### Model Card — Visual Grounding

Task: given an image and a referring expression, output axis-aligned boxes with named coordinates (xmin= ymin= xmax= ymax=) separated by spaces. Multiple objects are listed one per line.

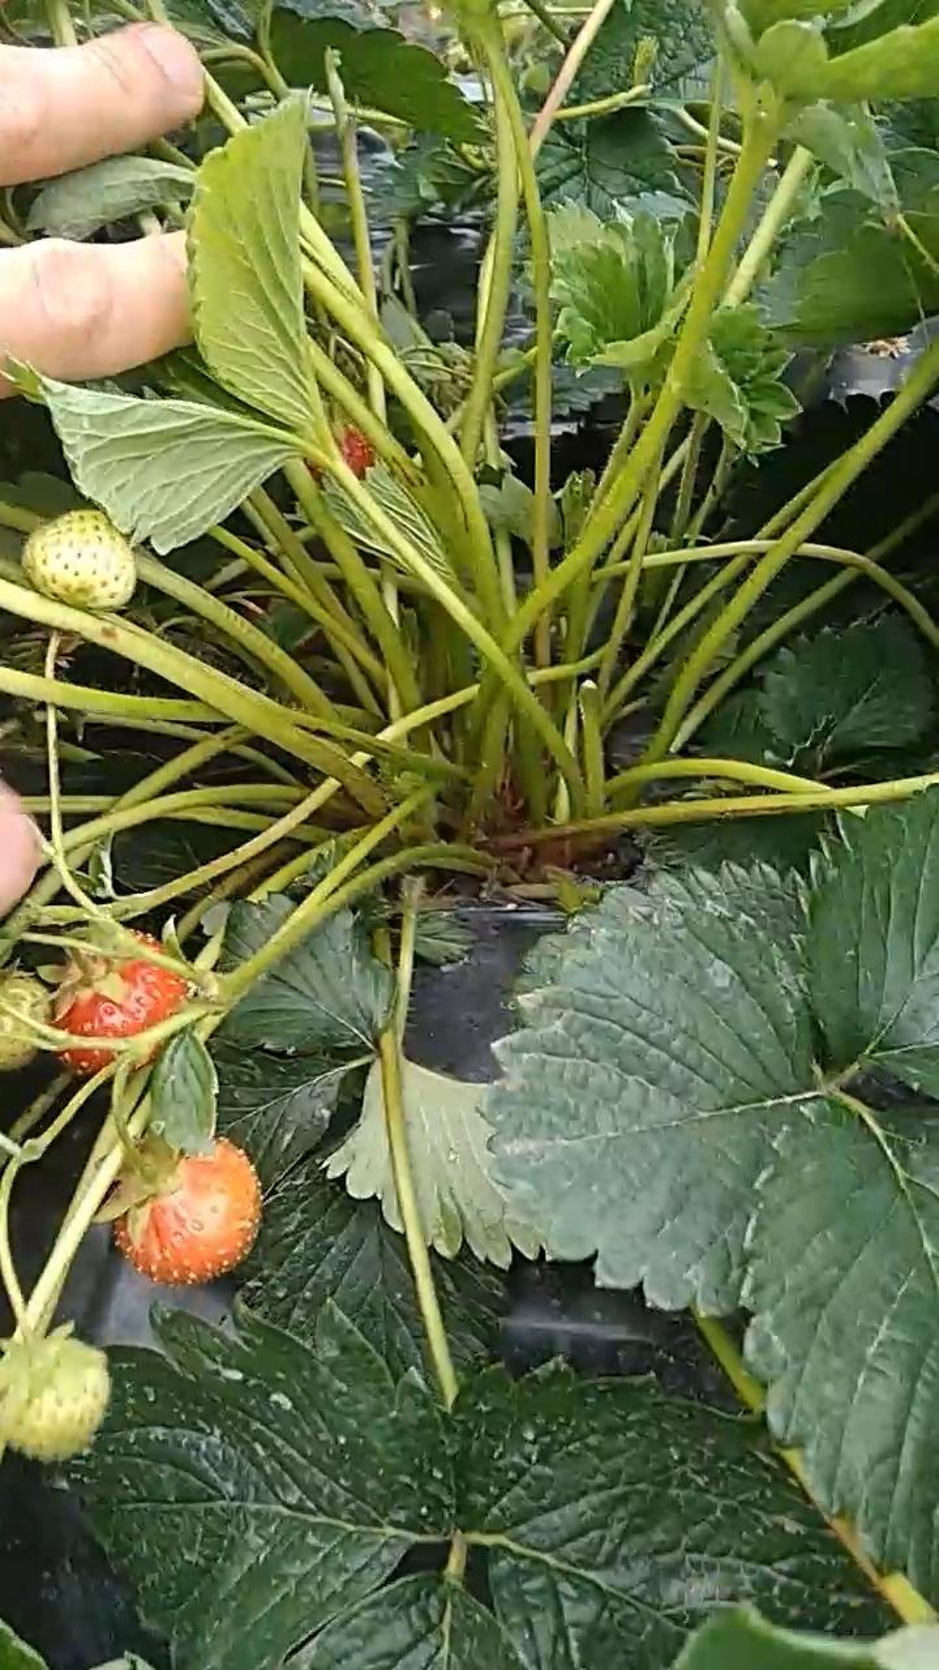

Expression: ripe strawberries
xmin=39 ymin=898 xmax=199 ymax=1081
xmin=298 ymin=407 xmax=379 ymax=496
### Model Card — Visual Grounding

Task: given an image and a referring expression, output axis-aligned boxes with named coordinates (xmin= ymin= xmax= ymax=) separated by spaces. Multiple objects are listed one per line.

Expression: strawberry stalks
xmin=96 ymin=1093 xmax=170 ymax=1187
xmin=57 ymin=914 xmax=136 ymax=1008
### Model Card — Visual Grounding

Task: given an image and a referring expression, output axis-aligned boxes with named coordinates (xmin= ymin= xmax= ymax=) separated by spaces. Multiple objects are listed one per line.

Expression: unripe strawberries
xmin=0 ymin=960 xmax=59 ymax=1107
xmin=29 ymin=504 xmax=156 ymax=617
xmin=97 ymin=1126 xmax=285 ymax=1300
xmin=4 ymin=1326 xmax=130 ymax=1482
